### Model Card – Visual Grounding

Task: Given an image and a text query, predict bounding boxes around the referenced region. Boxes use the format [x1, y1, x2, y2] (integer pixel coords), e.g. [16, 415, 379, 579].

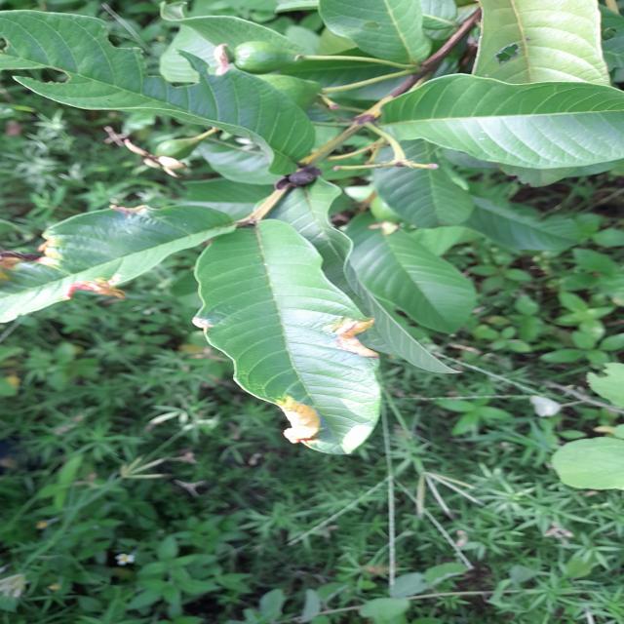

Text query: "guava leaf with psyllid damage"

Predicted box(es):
[175, 205, 409, 461]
